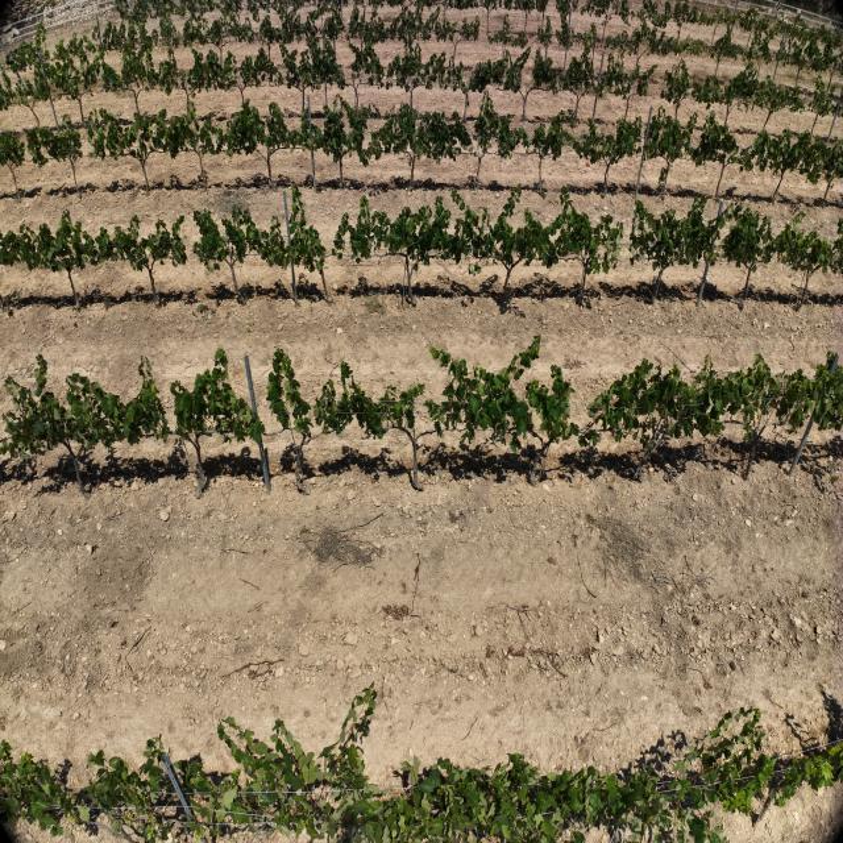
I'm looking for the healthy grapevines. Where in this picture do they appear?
[120,348,245,512]
[597,354,719,490]
[454,365,616,499]
[699,346,830,494]
[354,370,487,502]
[234,344,356,504]
[0,349,133,506]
